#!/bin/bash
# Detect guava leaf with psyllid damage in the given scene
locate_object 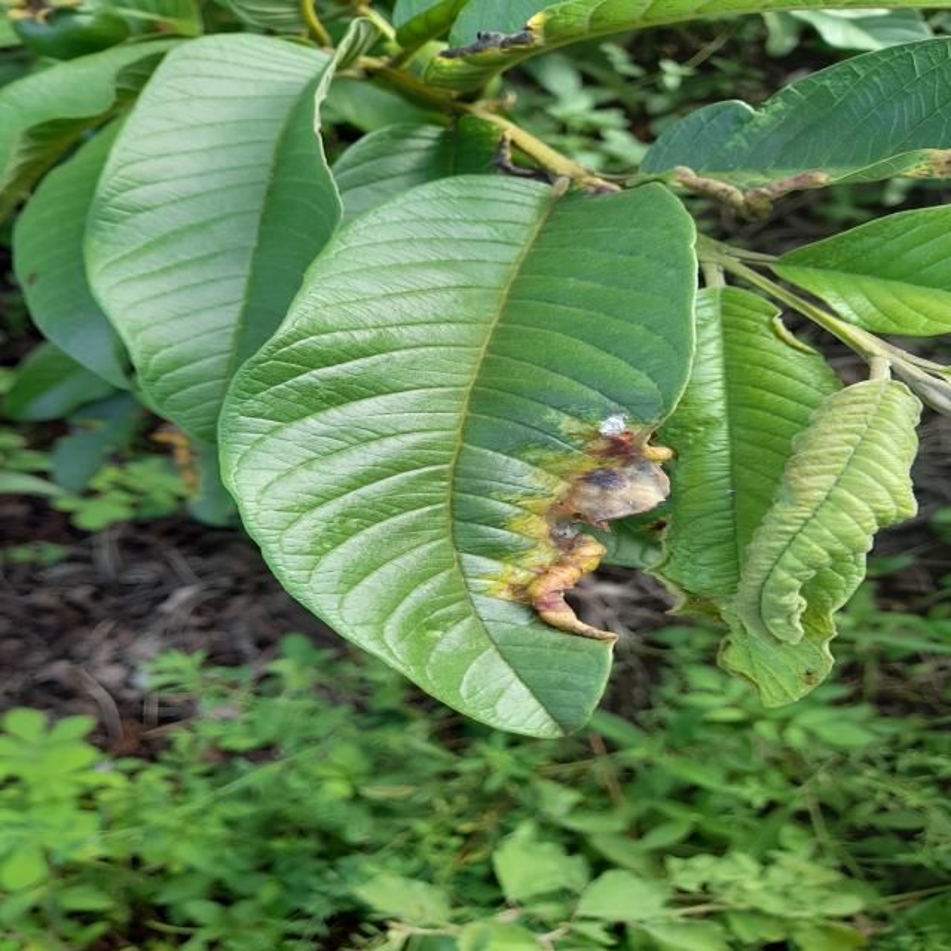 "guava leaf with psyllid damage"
[215,150,723,780]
